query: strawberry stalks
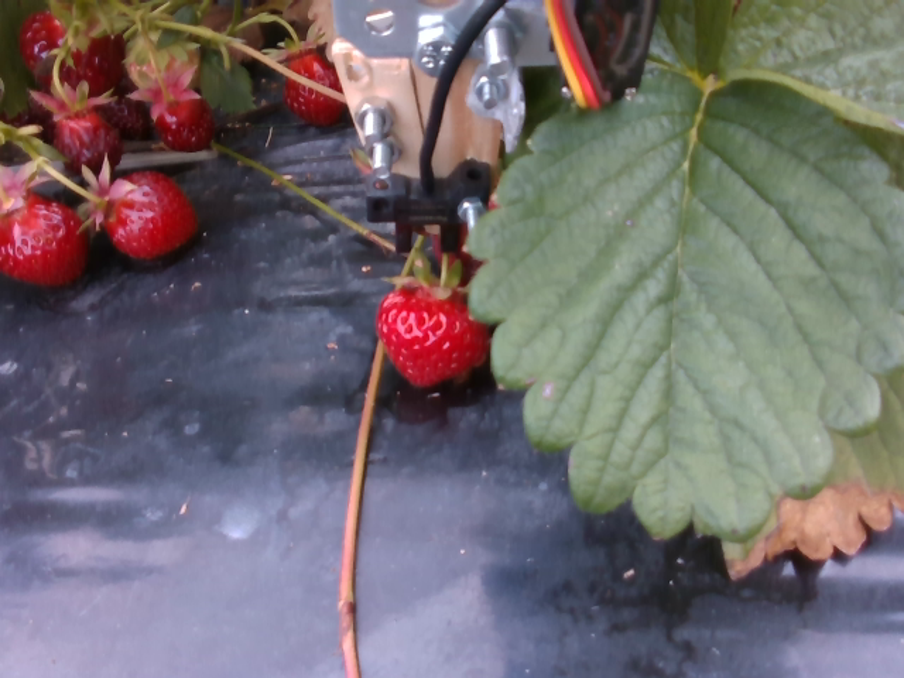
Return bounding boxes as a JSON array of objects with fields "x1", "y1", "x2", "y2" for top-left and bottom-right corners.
[
  {"x1": 9, "y1": 124, "x2": 121, "y2": 213},
  {"x1": 241, "y1": 12, "x2": 312, "y2": 67},
  {"x1": 130, "y1": 27, "x2": 185, "y2": 103},
  {"x1": 425, "y1": 227, "x2": 461, "y2": 312},
  {"x1": 53, "y1": 39, "x2": 84, "y2": 115}
]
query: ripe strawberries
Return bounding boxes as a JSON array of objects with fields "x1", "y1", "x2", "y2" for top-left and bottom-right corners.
[
  {"x1": 56, "y1": 103, "x2": 120, "y2": 180},
  {"x1": 149, "y1": 89, "x2": 205, "y2": 146},
  {"x1": 102, "y1": 166, "x2": 190, "y2": 257},
  {"x1": 382, "y1": 288, "x2": 489, "y2": 381},
  {"x1": 0, "y1": 192, "x2": 81, "y2": 292},
  {"x1": 26, "y1": 10, "x2": 116, "y2": 93},
  {"x1": 285, "y1": 58, "x2": 346, "y2": 117}
]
